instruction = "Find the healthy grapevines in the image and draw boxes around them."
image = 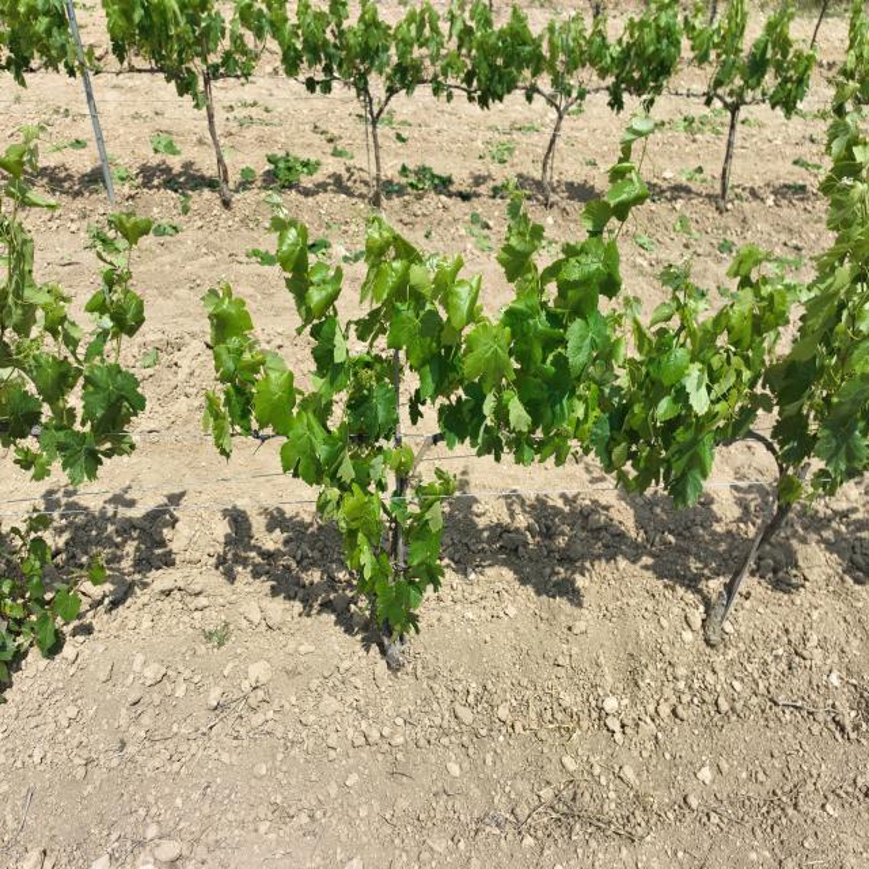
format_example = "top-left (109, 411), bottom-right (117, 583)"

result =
top-left (634, 202), bottom-right (869, 661)
top-left (197, 197), bottom-right (629, 707)
top-left (0, 190), bottom-right (170, 675)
